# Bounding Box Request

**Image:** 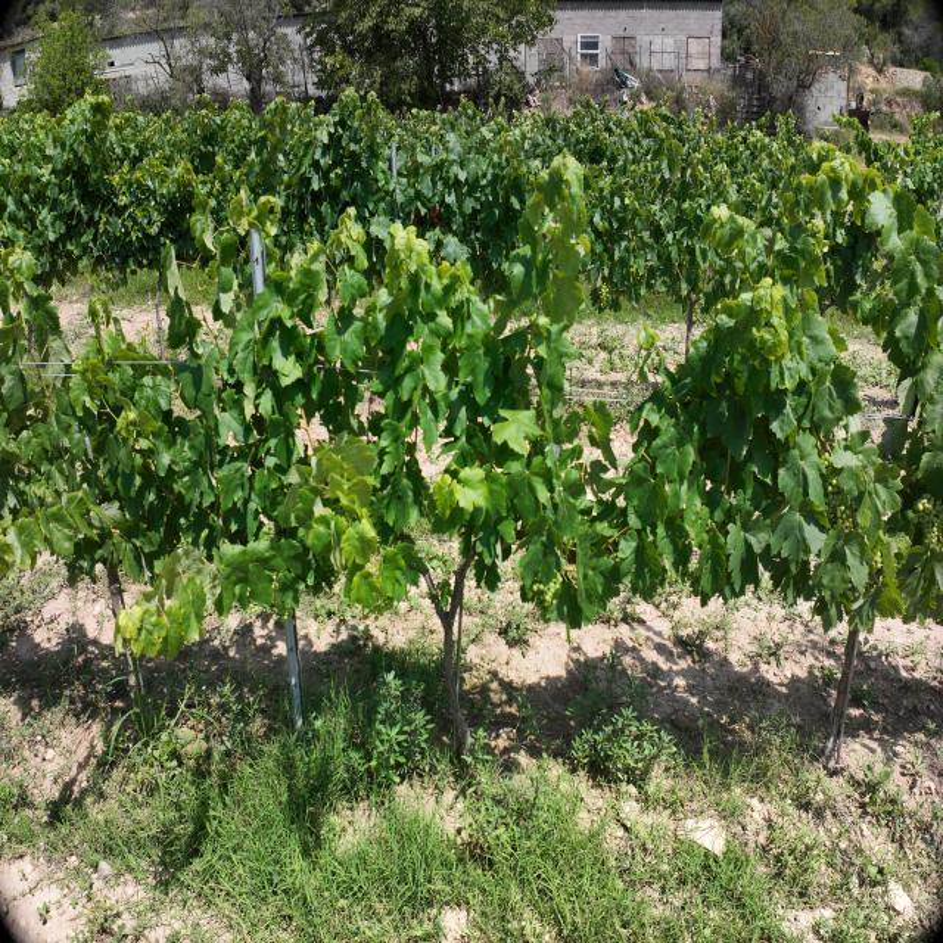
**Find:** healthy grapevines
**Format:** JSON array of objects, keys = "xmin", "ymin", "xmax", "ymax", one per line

[
  {"xmin": 0, "ymin": 321, "xmax": 248, "ymax": 779},
  {"xmin": 617, "ymin": 261, "xmax": 943, "ymax": 800},
  {"xmin": 246, "ymin": 218, "xmax": 614, "ymax": 788}
]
